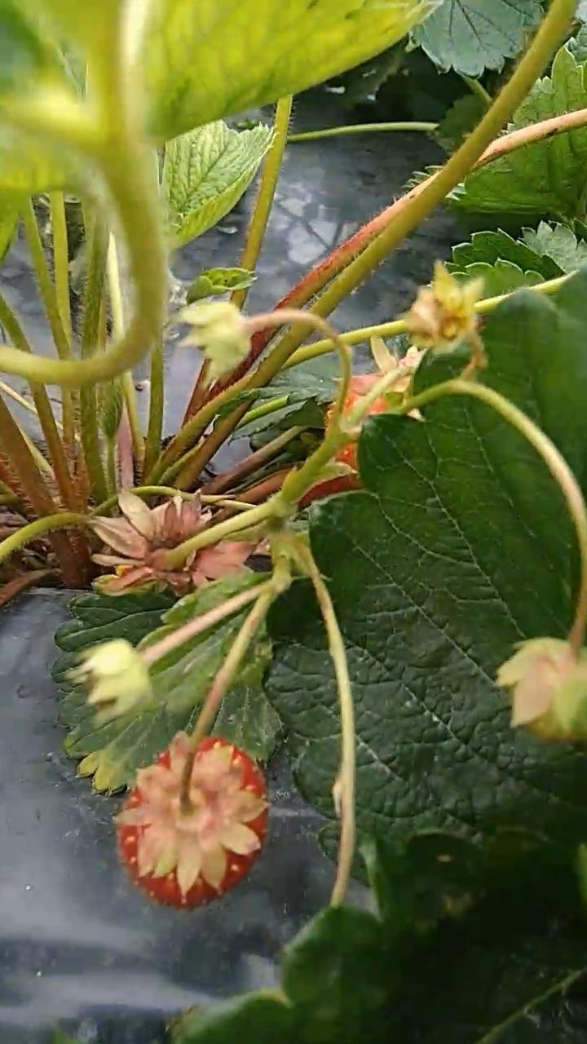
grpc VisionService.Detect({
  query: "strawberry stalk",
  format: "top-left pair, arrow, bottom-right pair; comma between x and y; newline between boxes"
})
152,695 -> 214,823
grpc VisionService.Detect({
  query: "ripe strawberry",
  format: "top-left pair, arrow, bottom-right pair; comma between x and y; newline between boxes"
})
113,723 -> 288,917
